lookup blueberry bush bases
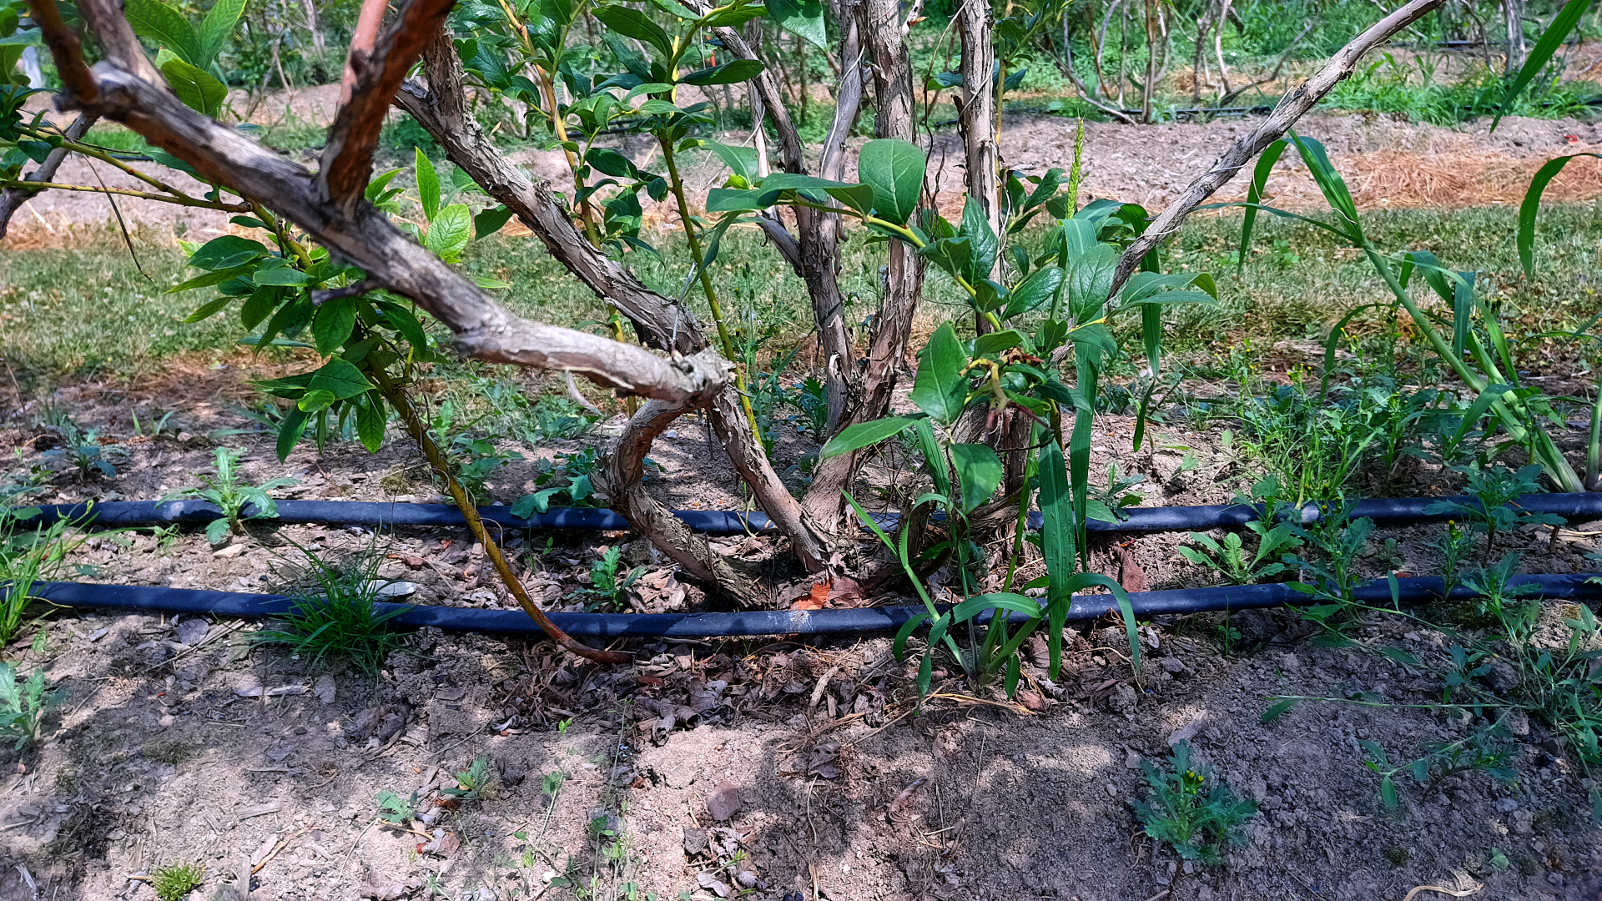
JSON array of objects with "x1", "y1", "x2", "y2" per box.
[
  {"x1": 1451, "y1": 54, "x2": 1577, "y2": 142},
  {"x1": 513, "y1": 263, "x2": 1144, "y2": 723},
  {"x1": 1045, "y1": 57, "x2": 1251, "y2": 148}
]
